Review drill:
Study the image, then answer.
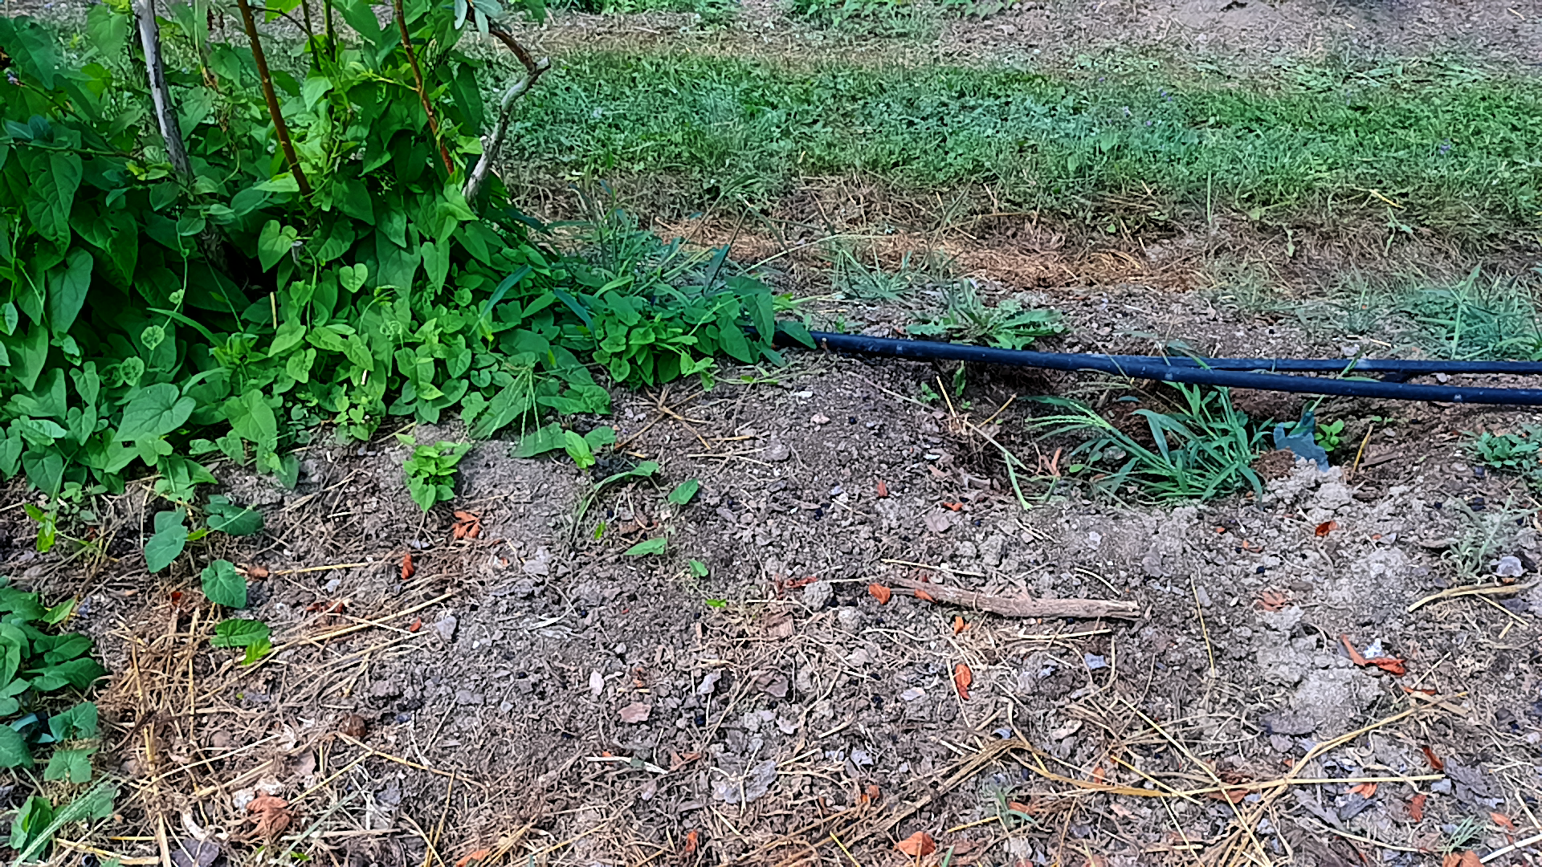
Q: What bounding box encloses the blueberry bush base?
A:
[153,63,549,371]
